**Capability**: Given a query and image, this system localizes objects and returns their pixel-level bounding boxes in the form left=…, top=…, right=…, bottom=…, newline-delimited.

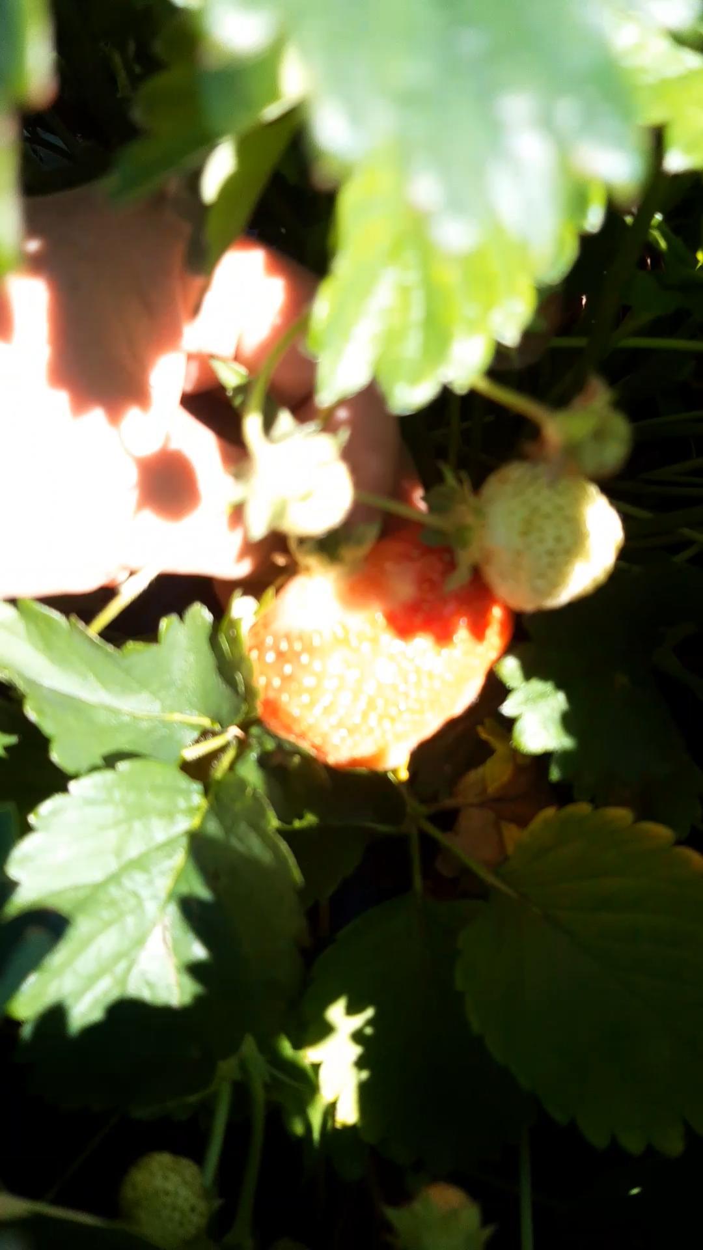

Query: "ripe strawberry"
left=245, top=538, right=510, bottom=786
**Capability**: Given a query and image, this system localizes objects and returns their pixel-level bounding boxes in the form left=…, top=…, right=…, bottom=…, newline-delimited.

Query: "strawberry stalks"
left=404, top=473, right=503, bottom=578
left=231, top=368, right=285, bottom=469
left=504, top=376, right=574, bottom=445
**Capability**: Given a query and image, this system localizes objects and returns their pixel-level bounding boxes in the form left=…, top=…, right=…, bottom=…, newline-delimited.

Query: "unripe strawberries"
left=456, top=451, right=624, bottom=616
left=240, top=428, right=362, bottom=543
left=538, top=393, right=643, bottom=478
